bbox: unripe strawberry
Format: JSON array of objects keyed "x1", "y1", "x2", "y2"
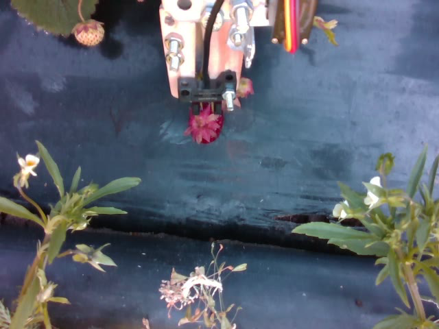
[{"x1": 72, "y1": 23, "x2": 104, "y2": 47}]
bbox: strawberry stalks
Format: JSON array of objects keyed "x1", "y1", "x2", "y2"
[
  {"x1": 196, "y1": 99, "x2": 211, "y2": 123},
  {"x1": 75, "y1": 0, "x2": 92, "y2": 30}
]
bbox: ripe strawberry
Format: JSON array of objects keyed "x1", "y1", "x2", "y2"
[{"x1": 190, "y1": 111, "x2": 225, "y2": 143}]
